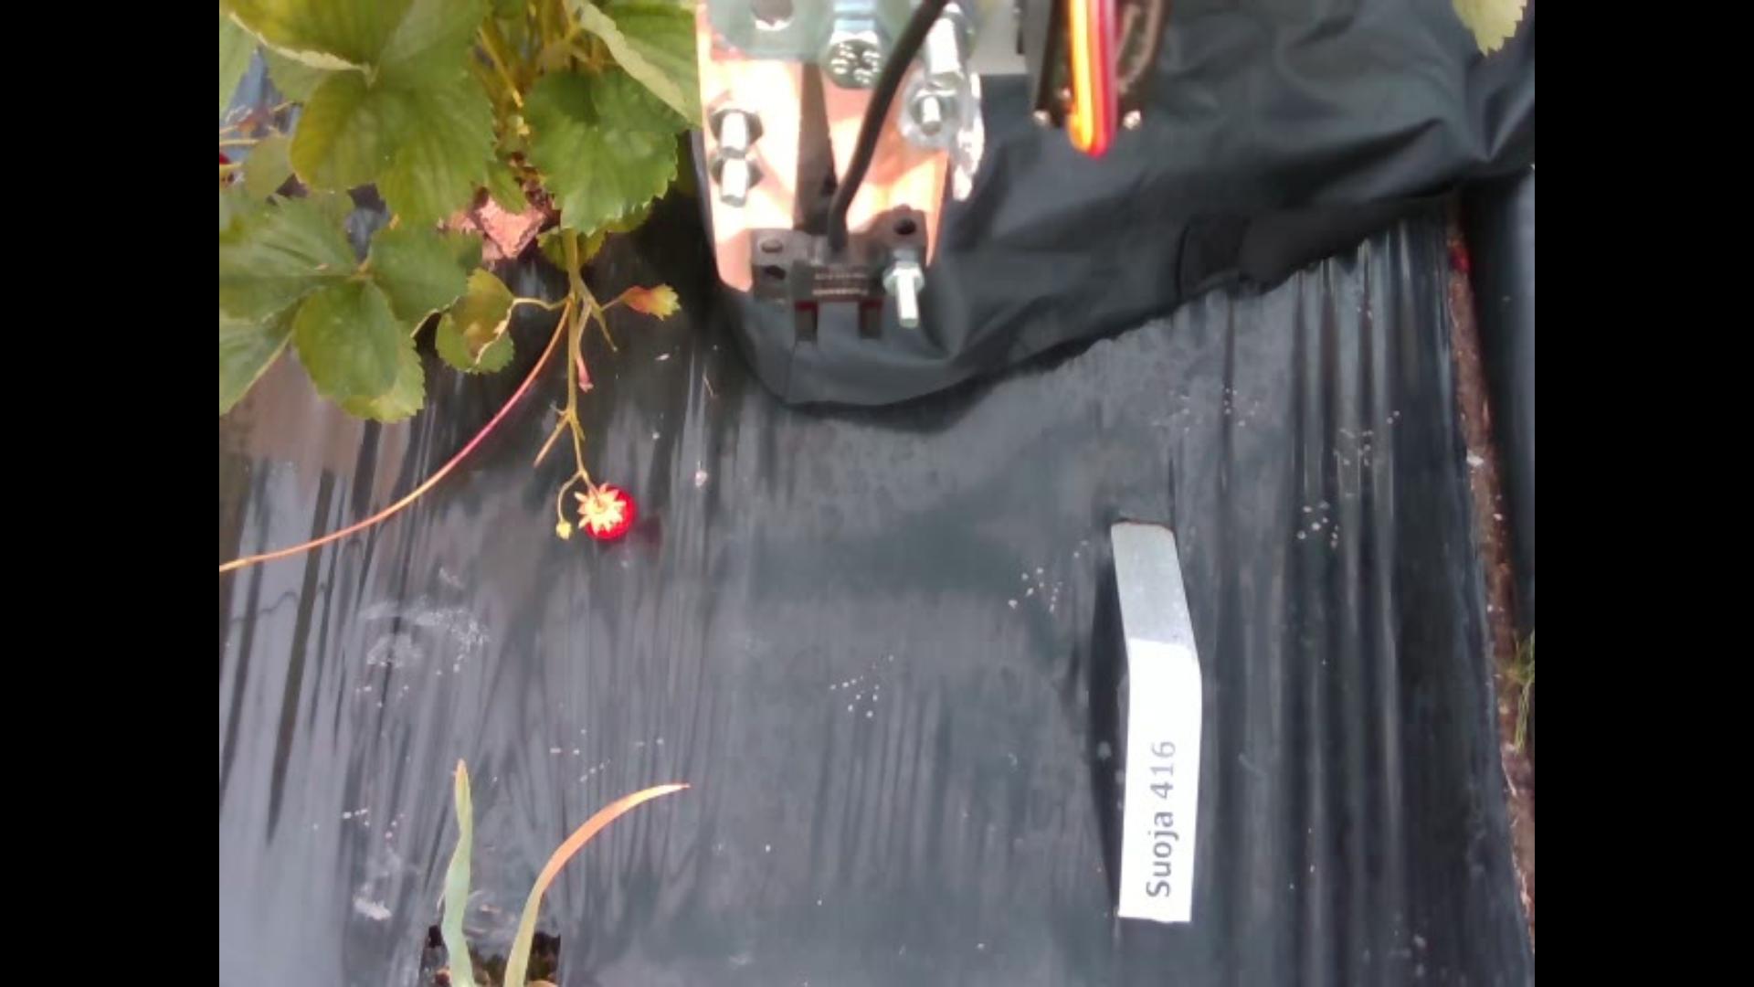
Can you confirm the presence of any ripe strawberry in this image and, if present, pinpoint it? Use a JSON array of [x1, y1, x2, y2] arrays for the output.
[[572, 481, 643, 551]]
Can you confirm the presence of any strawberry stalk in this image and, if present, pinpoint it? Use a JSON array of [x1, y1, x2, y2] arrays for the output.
[[563, 424, 608, 519]]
